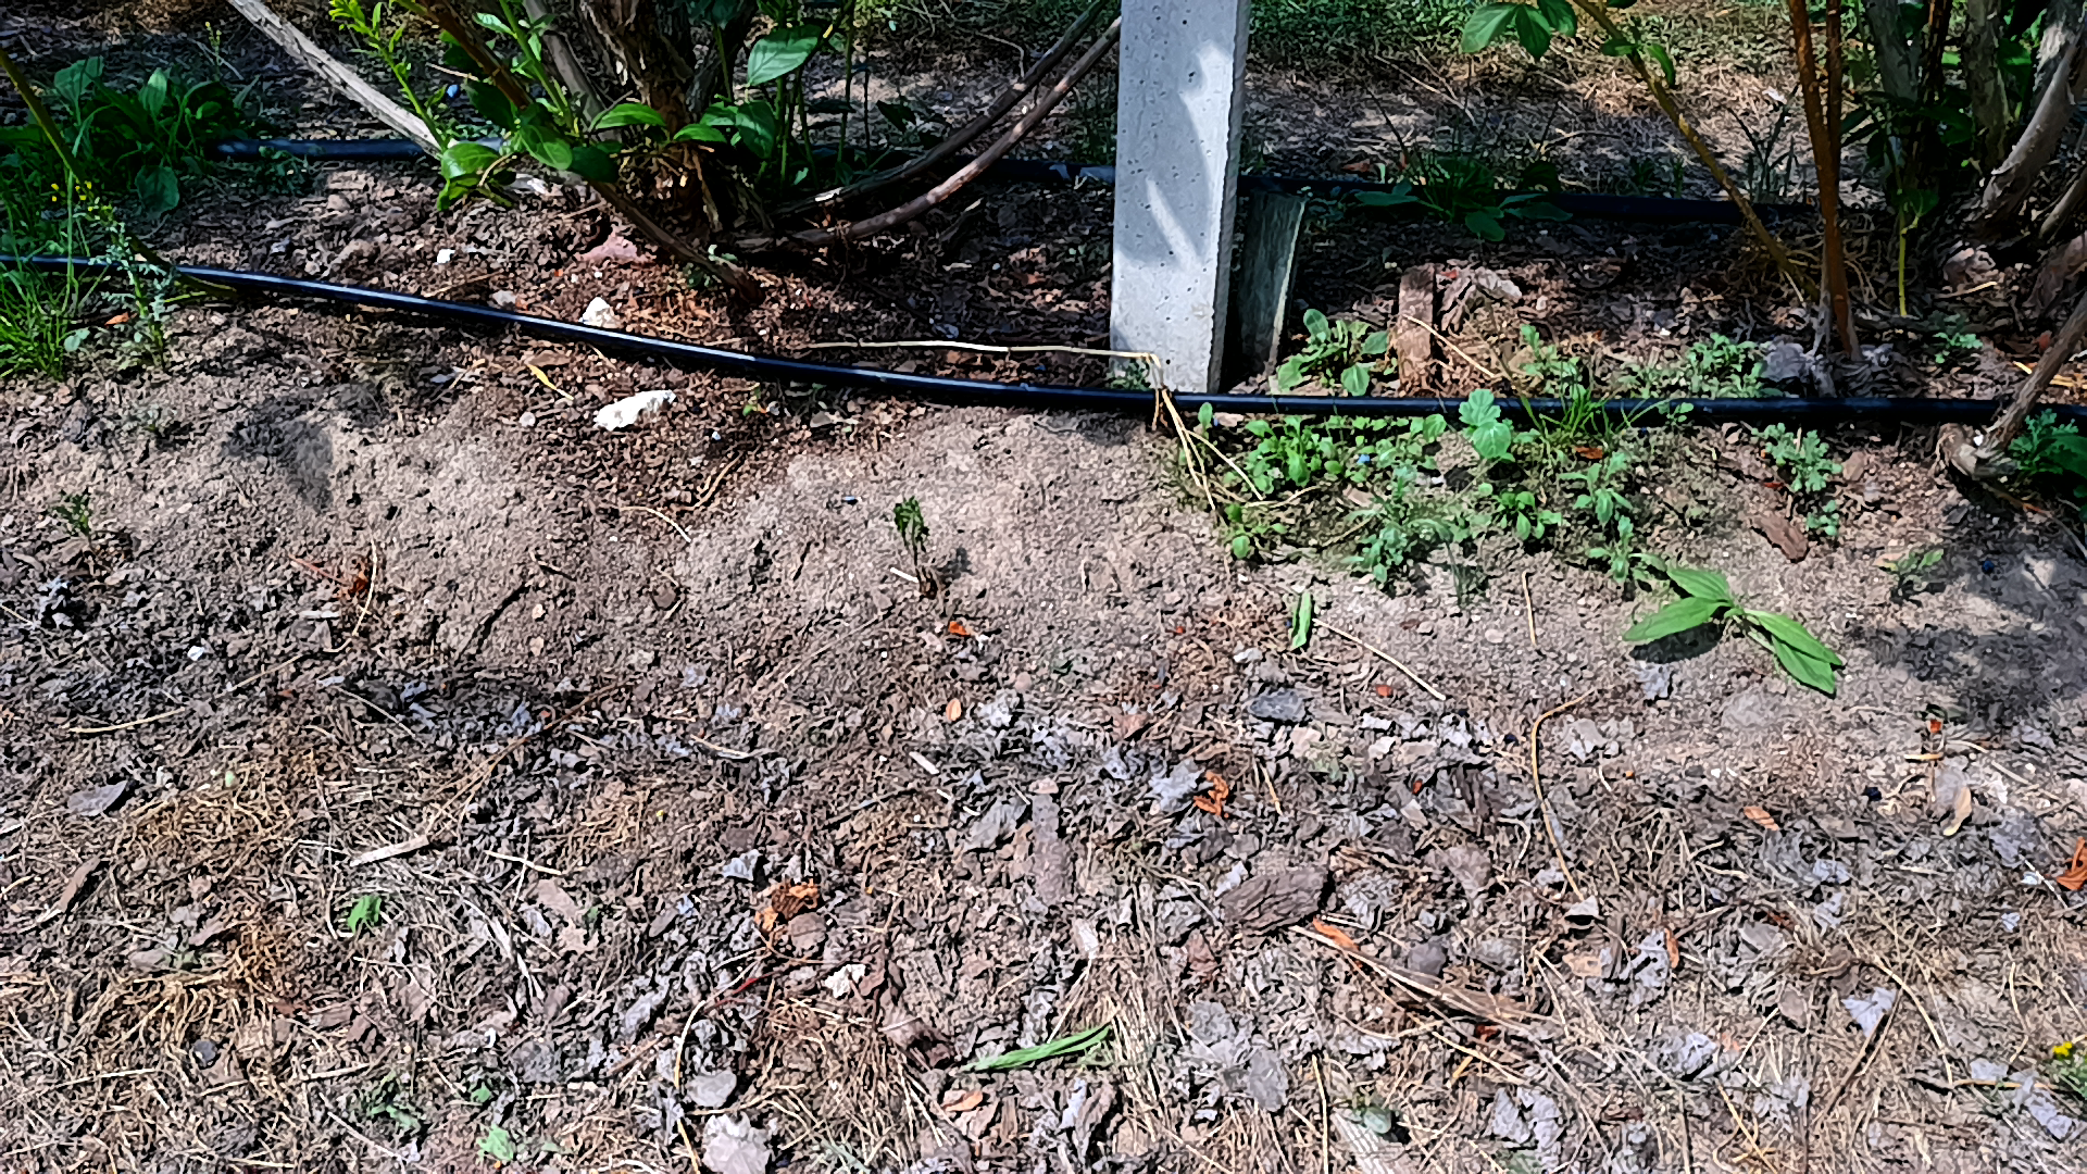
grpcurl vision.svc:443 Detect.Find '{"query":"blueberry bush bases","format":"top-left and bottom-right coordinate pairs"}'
top-left (1670, 17), bottom-right (2086, 460)
top-left (371, 42), bottom-right (1028, 341)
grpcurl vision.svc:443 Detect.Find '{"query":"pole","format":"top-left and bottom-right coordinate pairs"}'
top-left (1087, 21), bottom-right (1258, 412)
